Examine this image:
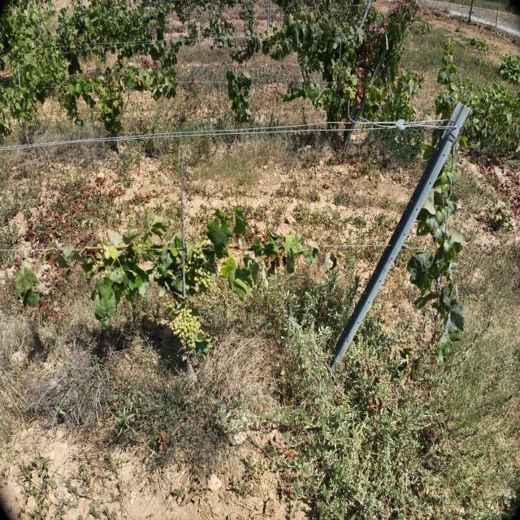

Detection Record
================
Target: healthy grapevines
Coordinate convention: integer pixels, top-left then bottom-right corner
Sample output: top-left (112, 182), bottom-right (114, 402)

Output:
top-left (408, 162), bottom-right (475, 375)
top-left (54, 202), bottom-right (316, 371)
